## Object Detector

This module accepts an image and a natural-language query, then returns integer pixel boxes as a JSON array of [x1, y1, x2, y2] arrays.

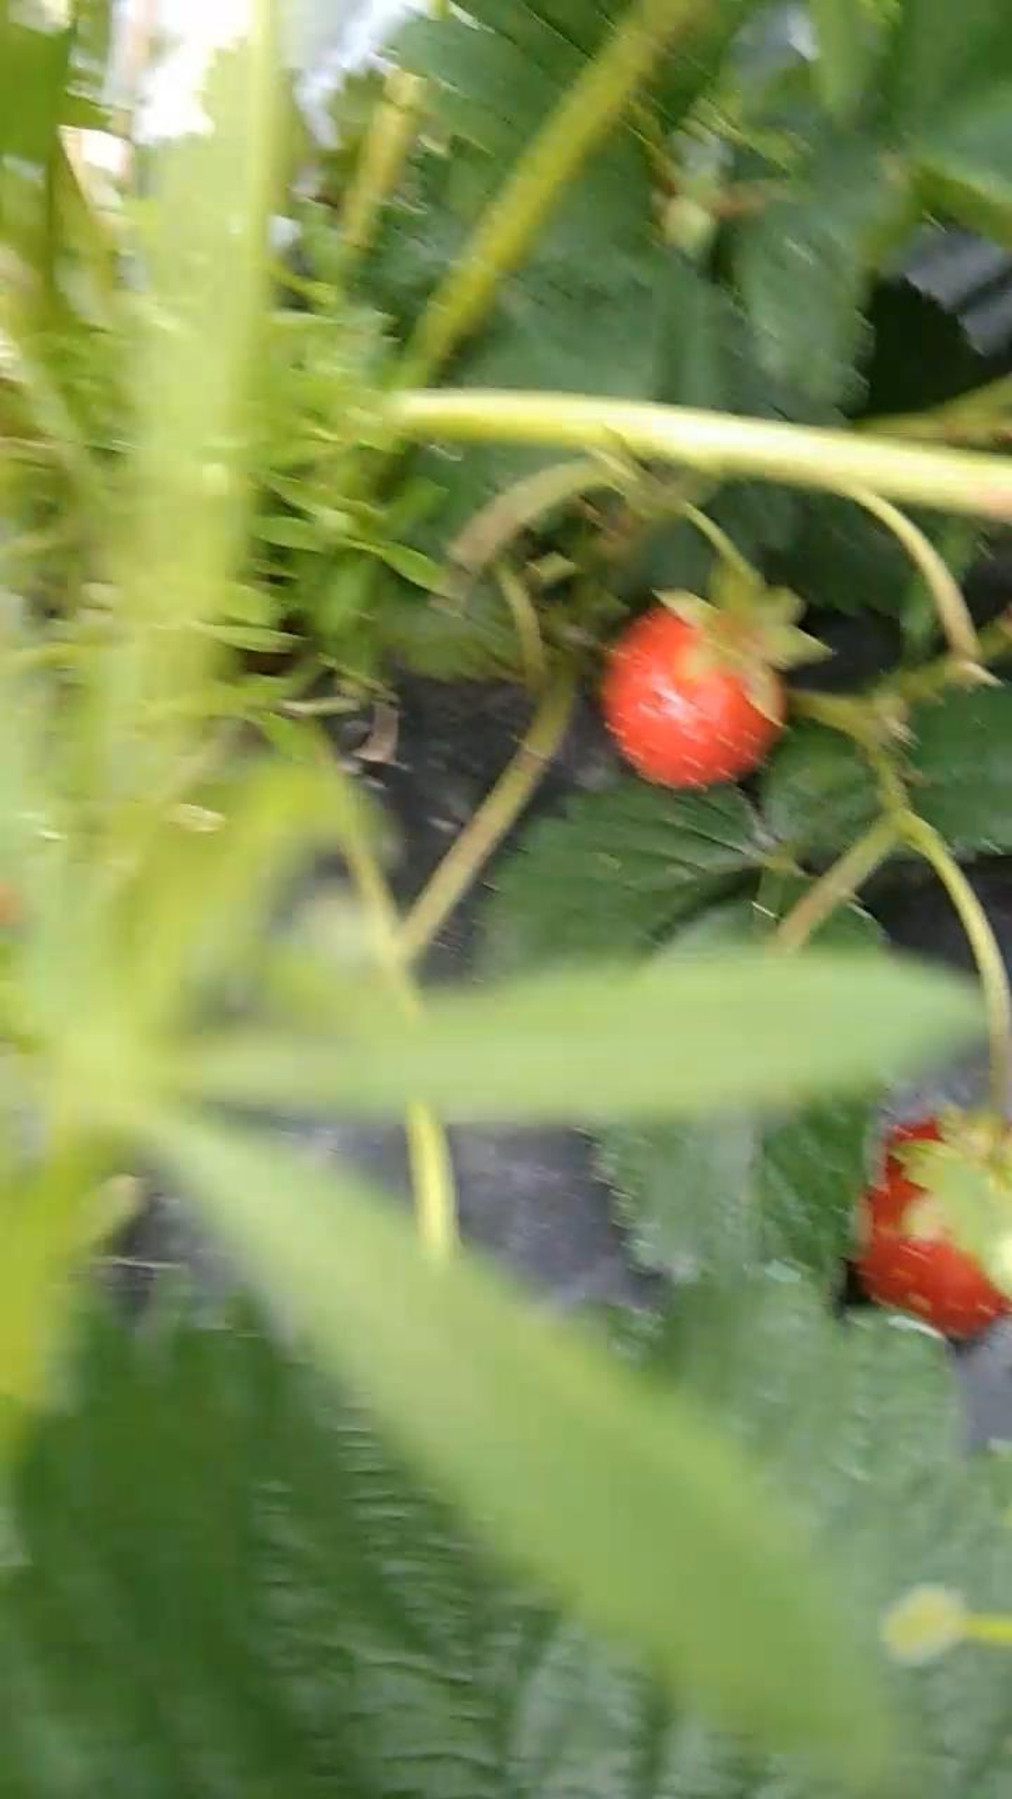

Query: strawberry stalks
[[674, 487, 793, 663], [919, 821, 1012, 1183]]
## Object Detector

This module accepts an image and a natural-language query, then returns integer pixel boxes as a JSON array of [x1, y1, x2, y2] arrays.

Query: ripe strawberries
[[591, 585, 798, 800], [859, 1105, 1012, 1353]]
